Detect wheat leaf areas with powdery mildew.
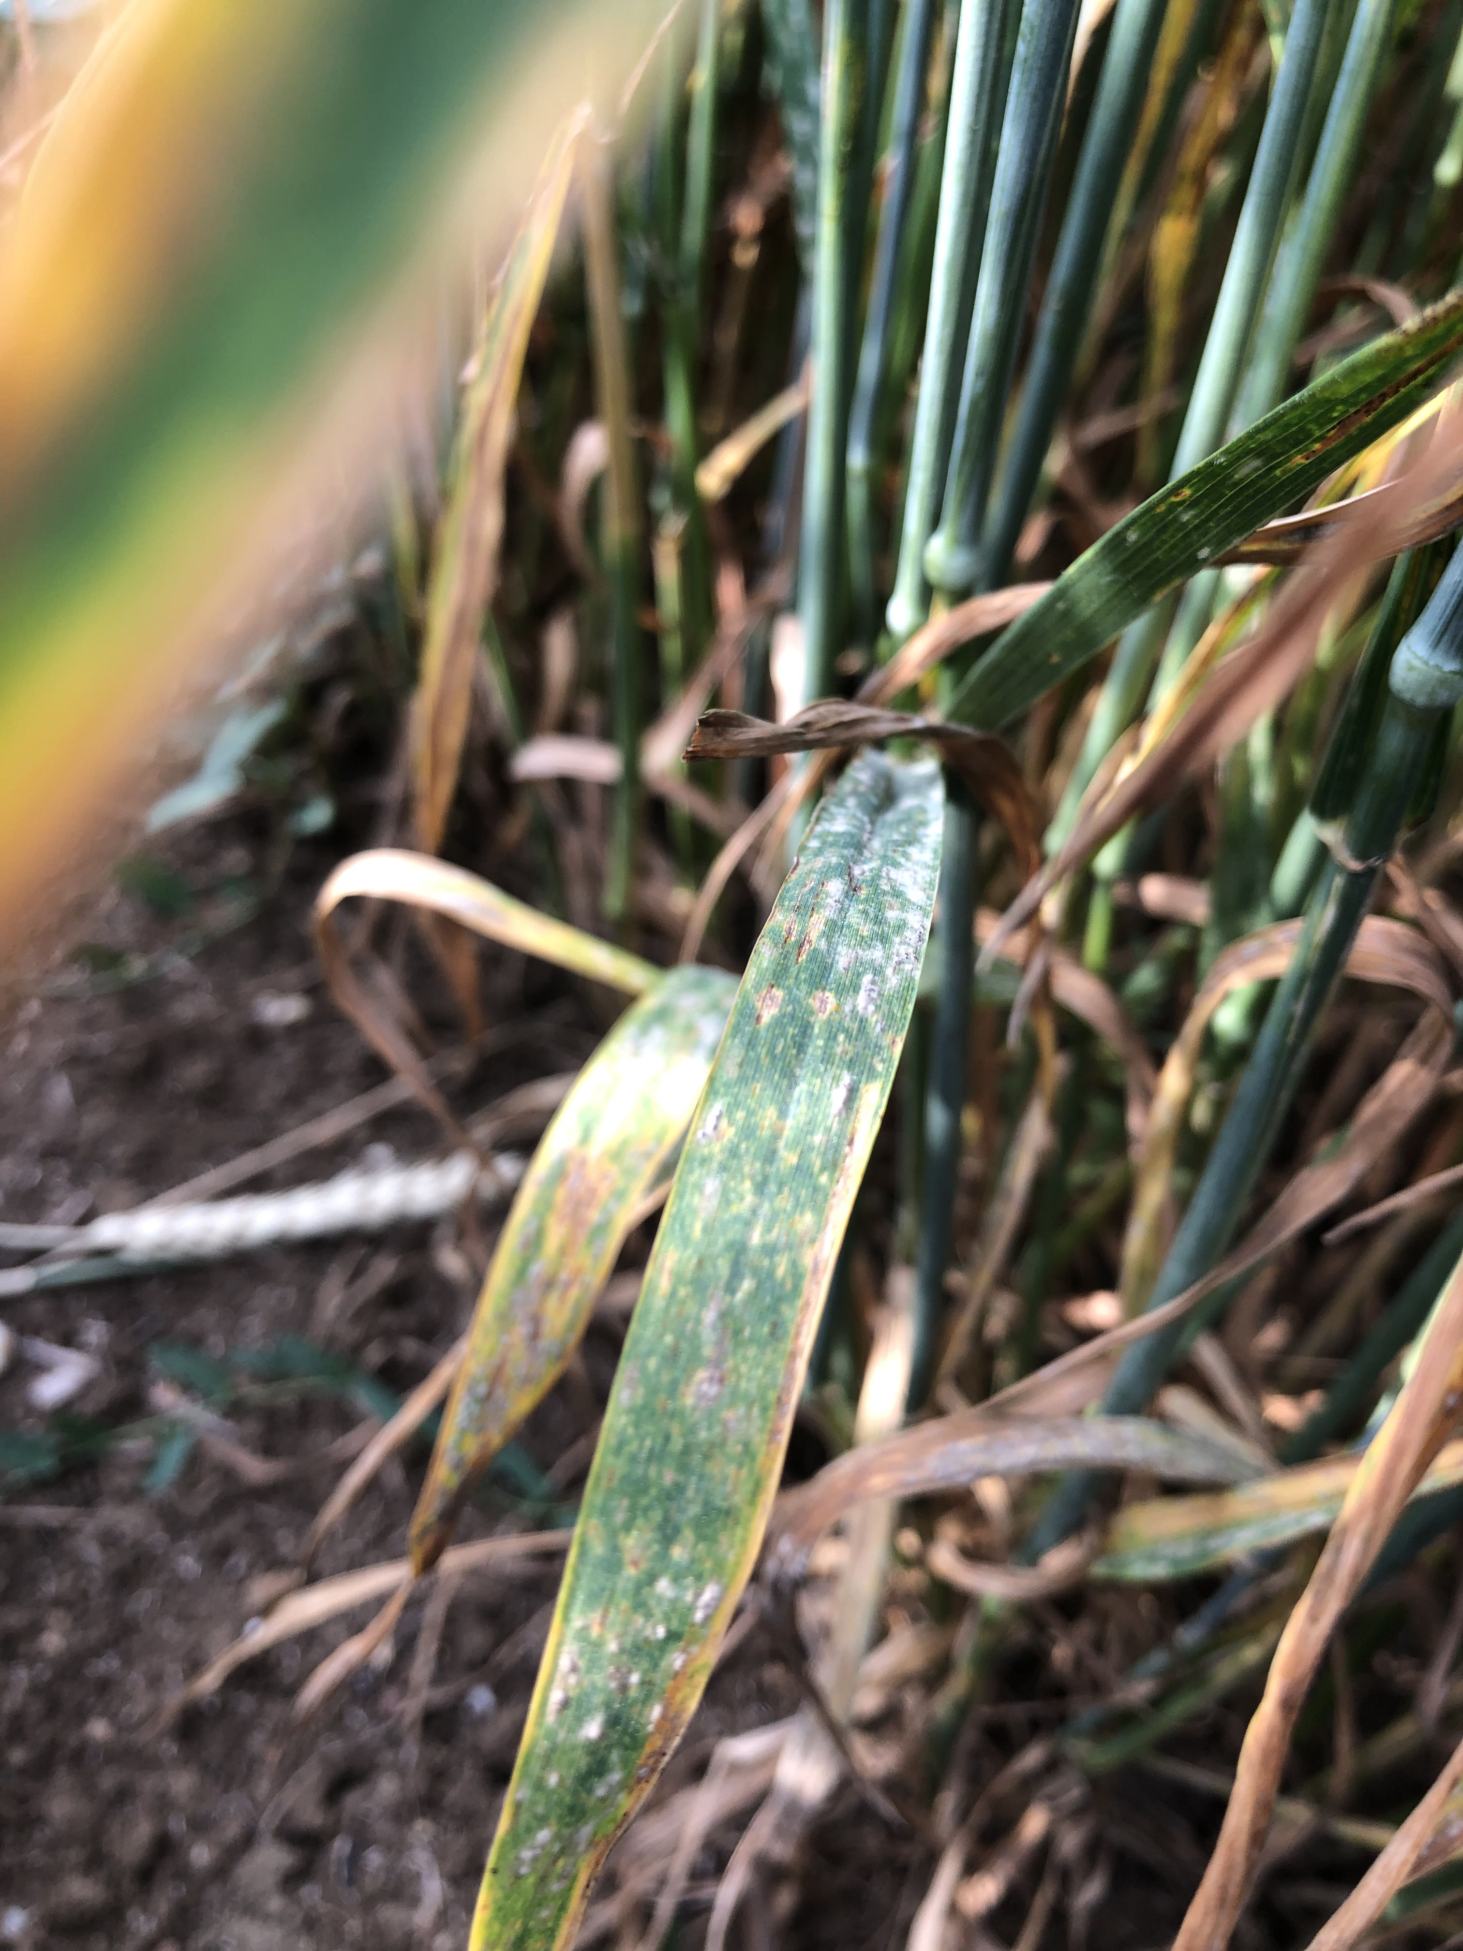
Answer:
[755,6,852,254]
[524,727,919,1888]
[1075,461,1371,644]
